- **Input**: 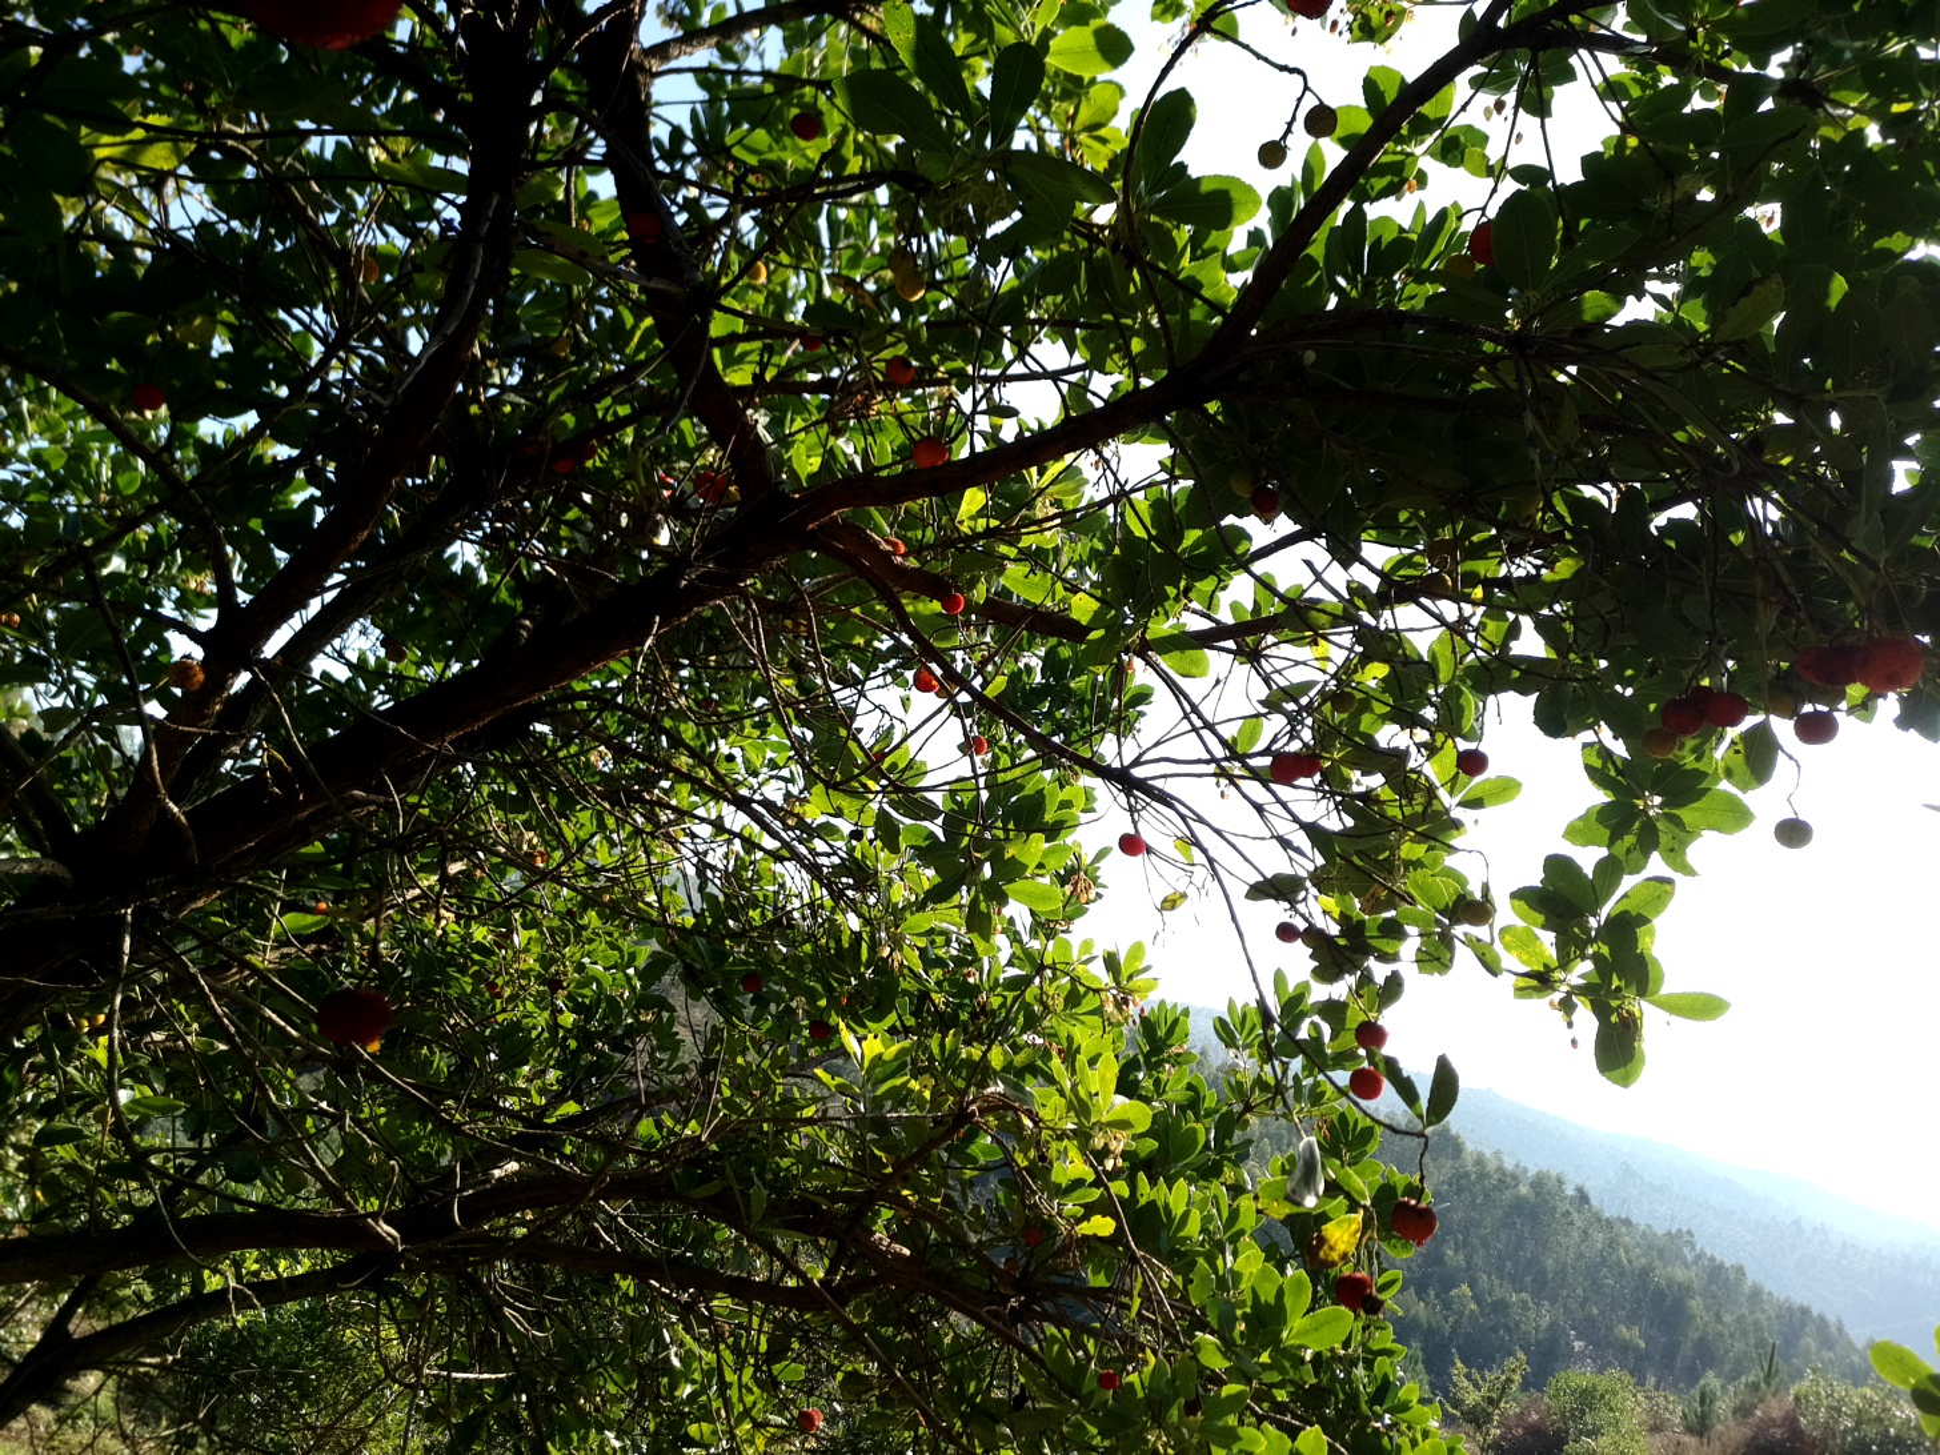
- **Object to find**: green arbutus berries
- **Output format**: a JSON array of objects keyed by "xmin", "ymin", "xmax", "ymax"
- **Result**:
[
  {"xmin": 1302, "ymin": 925, "xmax": 1326, "ymax": 949},
  {"xmin": 1460, "ymin": 896, "xmax": 1493, "ymax": 927},
  {"xmin": 1765, "ymin": 678, "xmax": 1805, "ymax": 717},
  {"xmin": 1443, "ymin": 250, "xmax": 1478, "ymax": 281},
  {"xmin": 1330, "ymin": 691, "xmax": 1359, "ymax": 713},
  {"xmin": 1771, "ymin": 815, "xmax": 1816, "ymax": 849},
  {"xmin": 1223, "ymin": 466, "xmax": 1262, "ymax": 501},
  {"xmin": 1642, "ymin": 725, "xmax": 1680, "ymax": 758}
]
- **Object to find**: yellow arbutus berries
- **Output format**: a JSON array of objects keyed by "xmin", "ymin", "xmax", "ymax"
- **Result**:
[
  {"xmin": 741, "ymin": 260, "xmax": 770, "ymax": 285},
  {"xmin": 893, "ymin": 264, "xmax": 931, "ymax": 302},
  {"xmin": 887, "ymin": 242, "xmax": 916, "ymax": 272},
  {"xmin": 163, "ymin": 659, "xmax": 209, "ymax": 692}
]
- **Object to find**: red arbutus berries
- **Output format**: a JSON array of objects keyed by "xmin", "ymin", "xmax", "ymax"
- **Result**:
[
  {"xmin": 940, "ymin": 591, "xmax": 964, "ymax": 614},
  {"xmin": 1331, "ymin": 1266, "xmax": 1373, "ymax": 1312},
  {"xmin": 789, "ymin": 114, "xmax": 821, "ymax": 140},
  {"xmin": 125, "ymin": 378, "xmax": 170, "ymax": 413},
  {"xmin": 1794, "ymin": 708, "xmax": 1839, "ymax": 747},
  {"xmin": 885, "ymin": 353, "xmax": 917, "ymax": 385},
  {"xmin": 1459, "ymin": 747, "xmax": 1489, "ymax": 778},
  {"xmin": 1295, "ymin": 751, "xmax": 1323, "ymax": 777},
  {"xmin": 1795, "ymin": 645, "xmax": 1832, "ymax": 681},
  {"xmin": 807, "ymin": 1017, "xmax": 834, "ymax": 1043},
  {"xmin": 1021, "ymin": 1224, "xmax": 1046, "ymax": 1246},
  {"xmin": 1354, "ymin": 1018, "xmax": 1390, "ymax": 1049},
  {"xmin": 1824, "ymin": 645, "xmax": 1872, "ymax": 684},
  {"xmin": 1660, "ymin": 697, "xmax": 1707, "ymax": 738},
  {"xmin": 1097, "ymin": 1368, "xmax": 1122, "ymax": 1392},
  {"xmin": 1387, "ymin": 1193, "xmax": 1437, "ymax": 1247},
  {"xmin": 914, "ymin": 666, "xmax": 939, "ymax": 694},
  {"xmin": 1276, "ymin": 922, "xmax": 1301, "ymax": 945},
  {"xmin": 1349, "ymin": 1064, "xmax": 1385, "ymax": 1102},
  {"xmin": 910, "ymin": 432, "xmax": 954, "ymax": 471},
  {"xmin": 1861, "ymin": 638, "xmax": 1929, "ymax": 691},
  {"xmin": 738, "ymin": 970, "xmax": 768, "ymax": 997},
  {"xmin": 1119, "ymin": 834, "xmax": 1147, "ymax": 856},
  {"xmin": 1268, "ymin": 751, "xmax": 1307, "ymax": 786},
  {"xmin": 1285, "ymin": 0, "xmax": 1334, "ymax": 22},
  {"xmin": 1701, "ymin": 690, "xmax": 1747, "ymax": 726},
  {"xmin": 966, "ymin": 735, "xmax": 988, "ymax": 755},
  {"xmin": 309, "ymin": 981, "xmax": 390, "ymax": 1052},
  {"xmin": 797, "ymin": 1407, "xmax": 824, "ymax": 1431},
  {"xmin": 691, "ymin": 469, "xmax": 728, "ymax": 505},
  {"xmin": 1468, "ymin": 216, "xmax": 1509, "ymax": 268}
]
